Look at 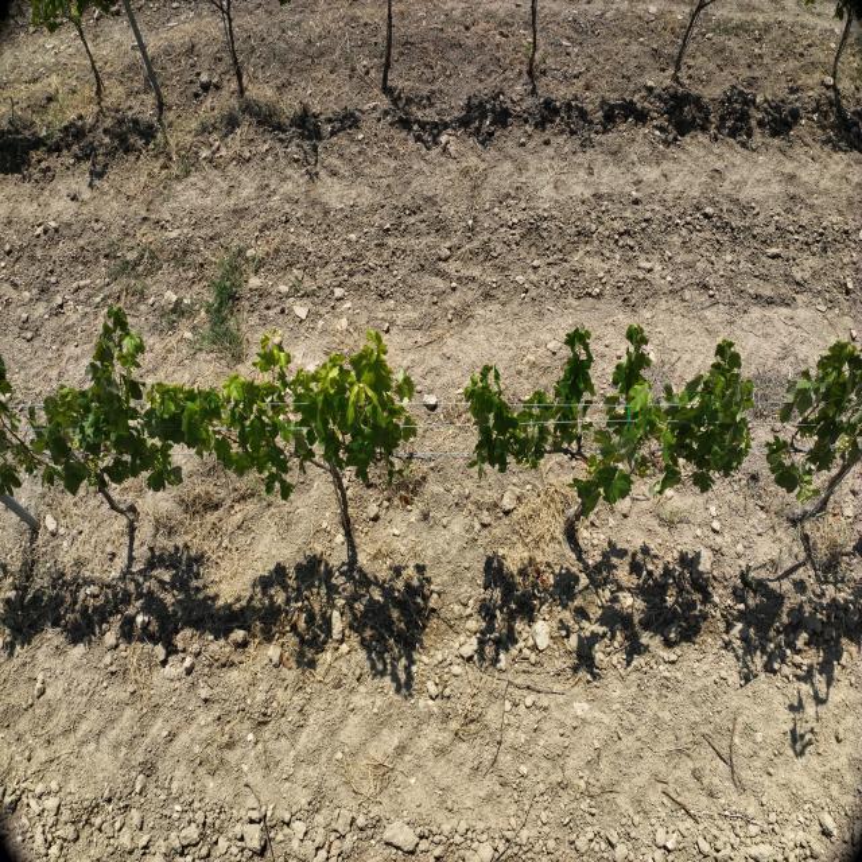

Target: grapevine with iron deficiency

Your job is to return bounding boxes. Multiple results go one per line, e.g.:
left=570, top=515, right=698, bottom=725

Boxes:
left=180, top=319, right=450, bottom=591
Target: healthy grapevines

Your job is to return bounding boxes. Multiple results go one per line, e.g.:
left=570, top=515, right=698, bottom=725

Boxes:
left=0, top=288, right=168, bottom=558
left=460, top=306, right=760, bottom=581
left=757, top=311, right=862, bottom=555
